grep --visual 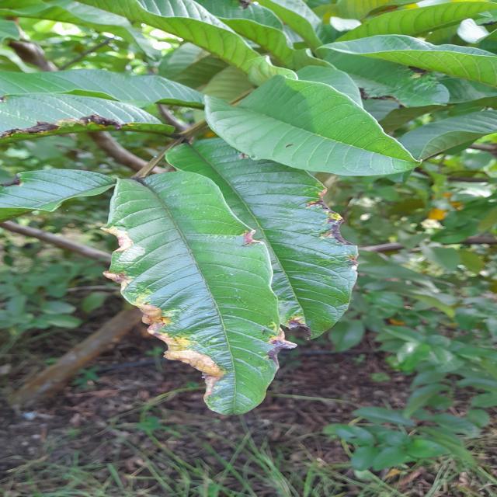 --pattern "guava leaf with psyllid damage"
[102,171,327,426]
